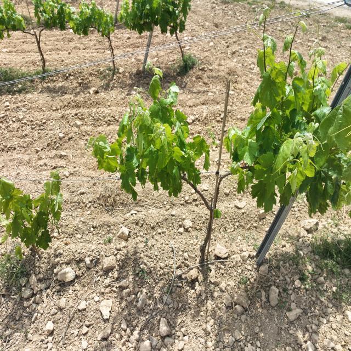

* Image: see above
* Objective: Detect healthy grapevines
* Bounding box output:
[89,20,351,278]
[0,167,70,267]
